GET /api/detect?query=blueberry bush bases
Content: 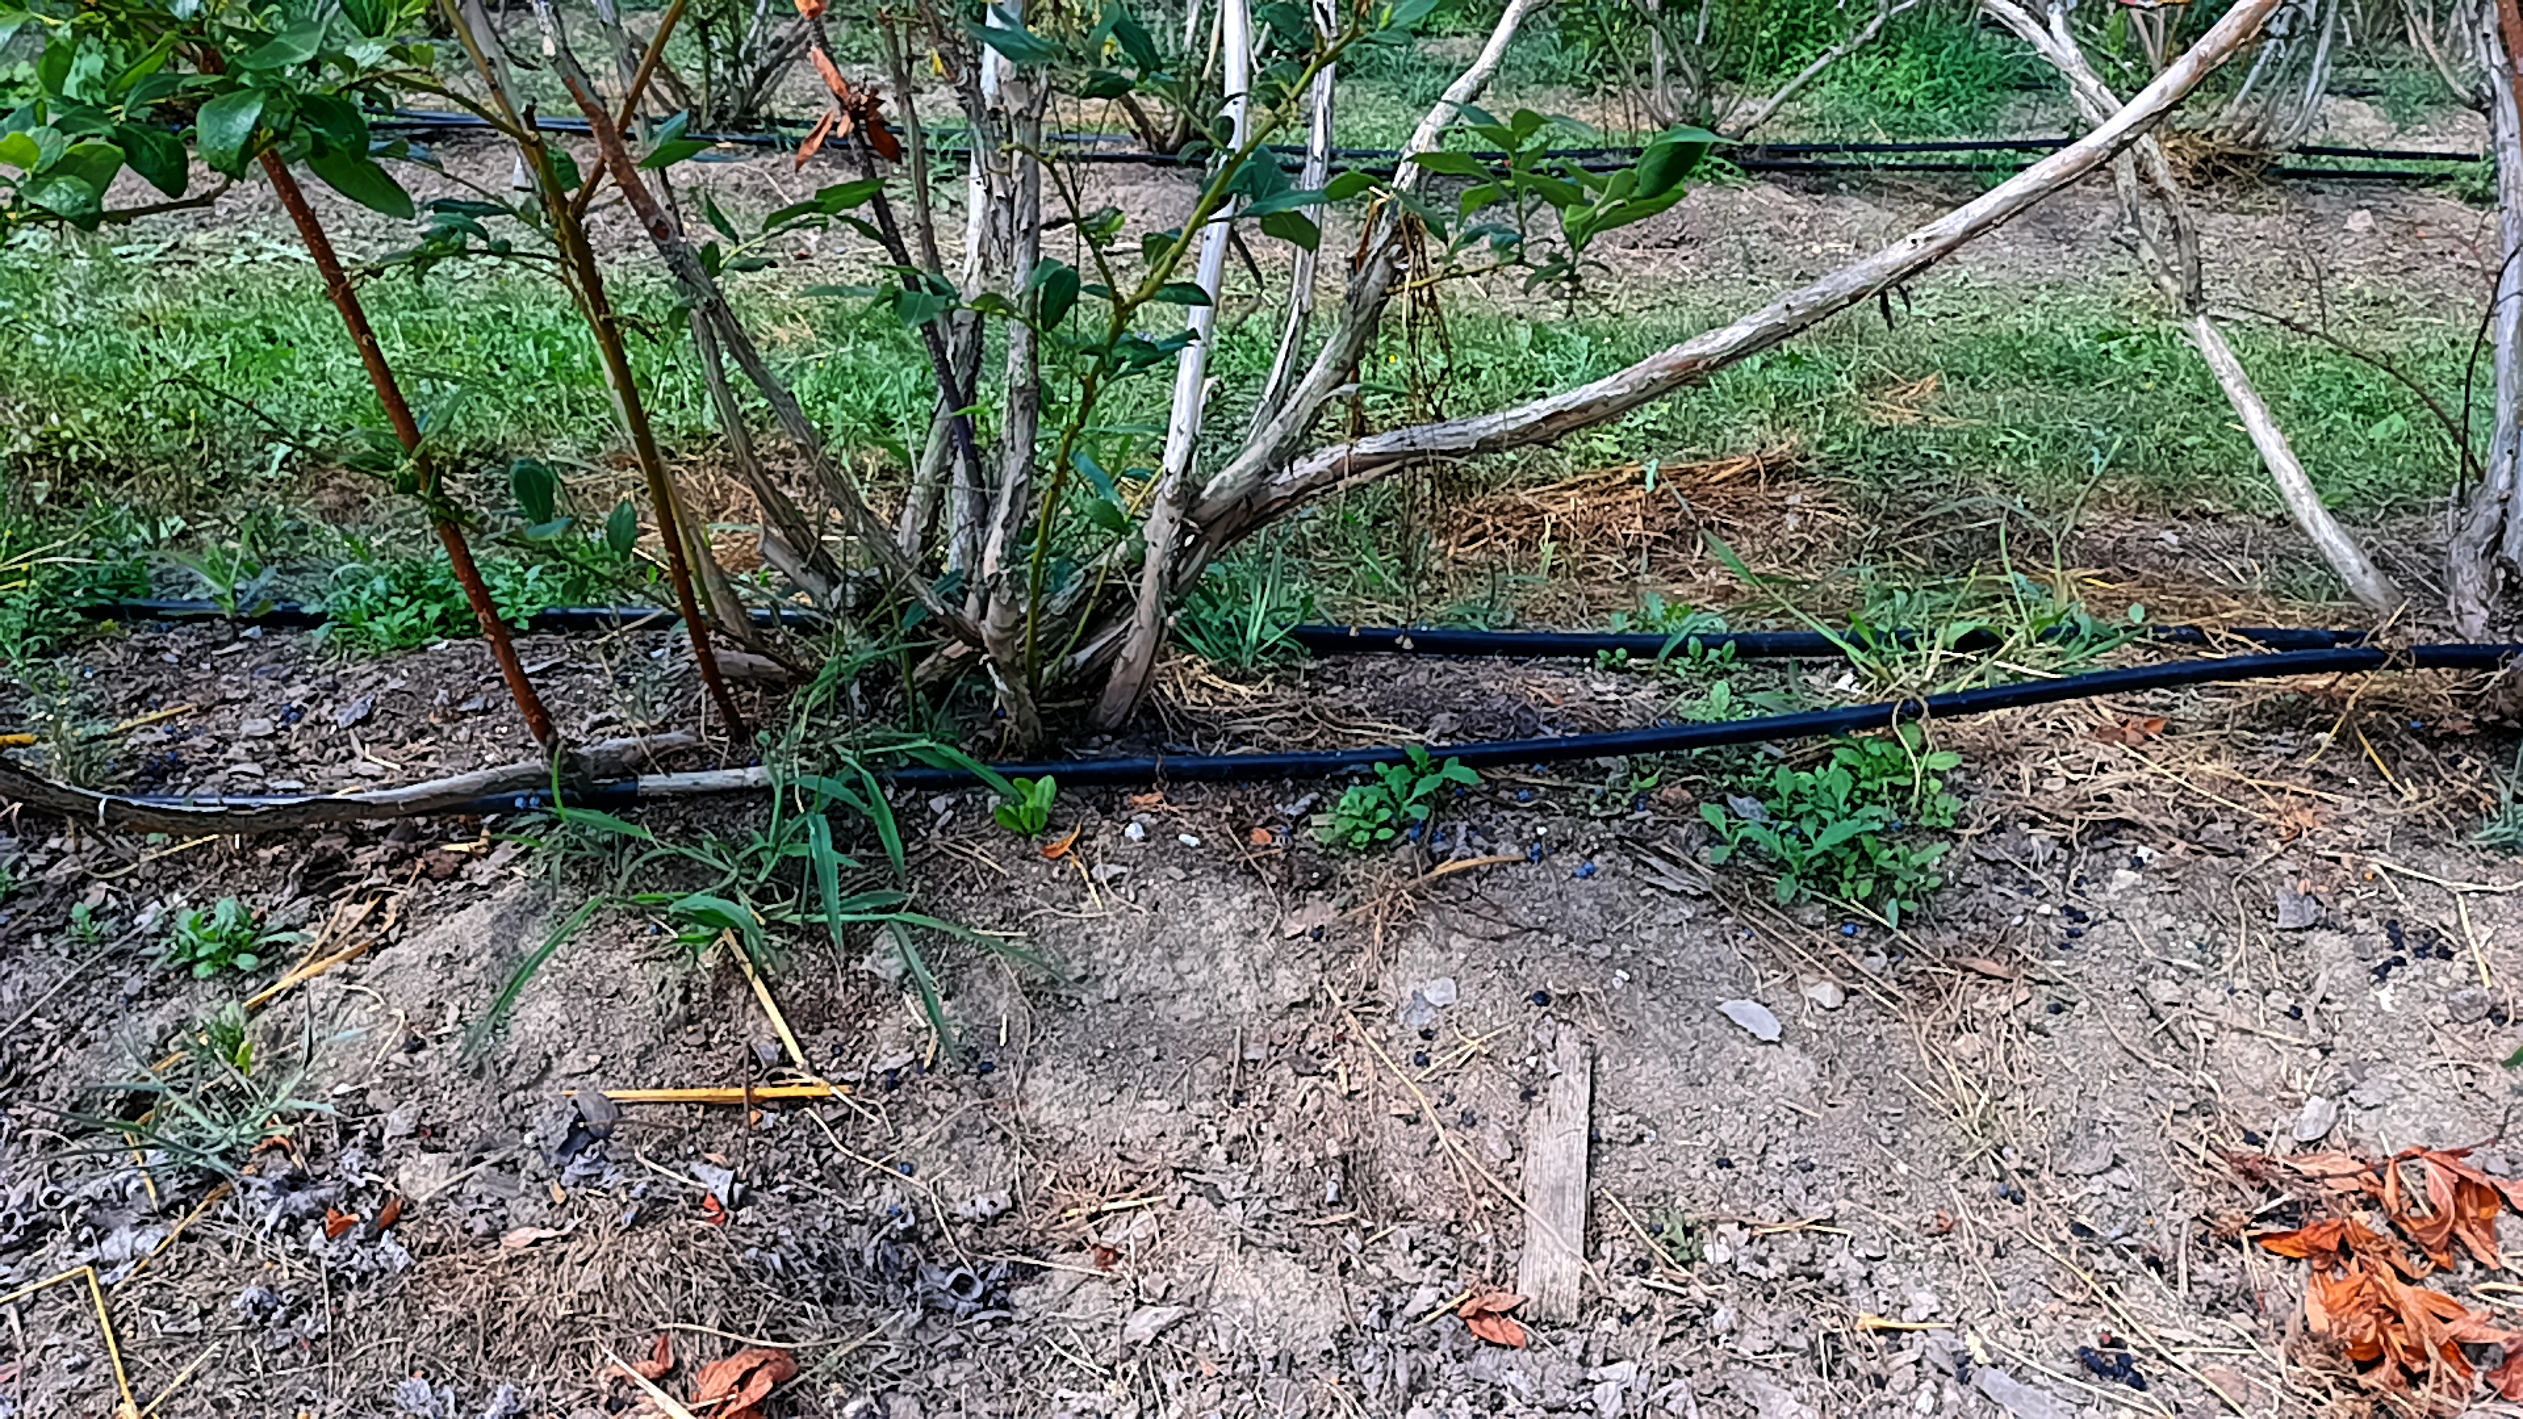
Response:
[2132,63,2332,193]
[662,74,782,159]
[1618,66,1800,183]
[2187,318,2523,733]
[484,355,1382,870]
